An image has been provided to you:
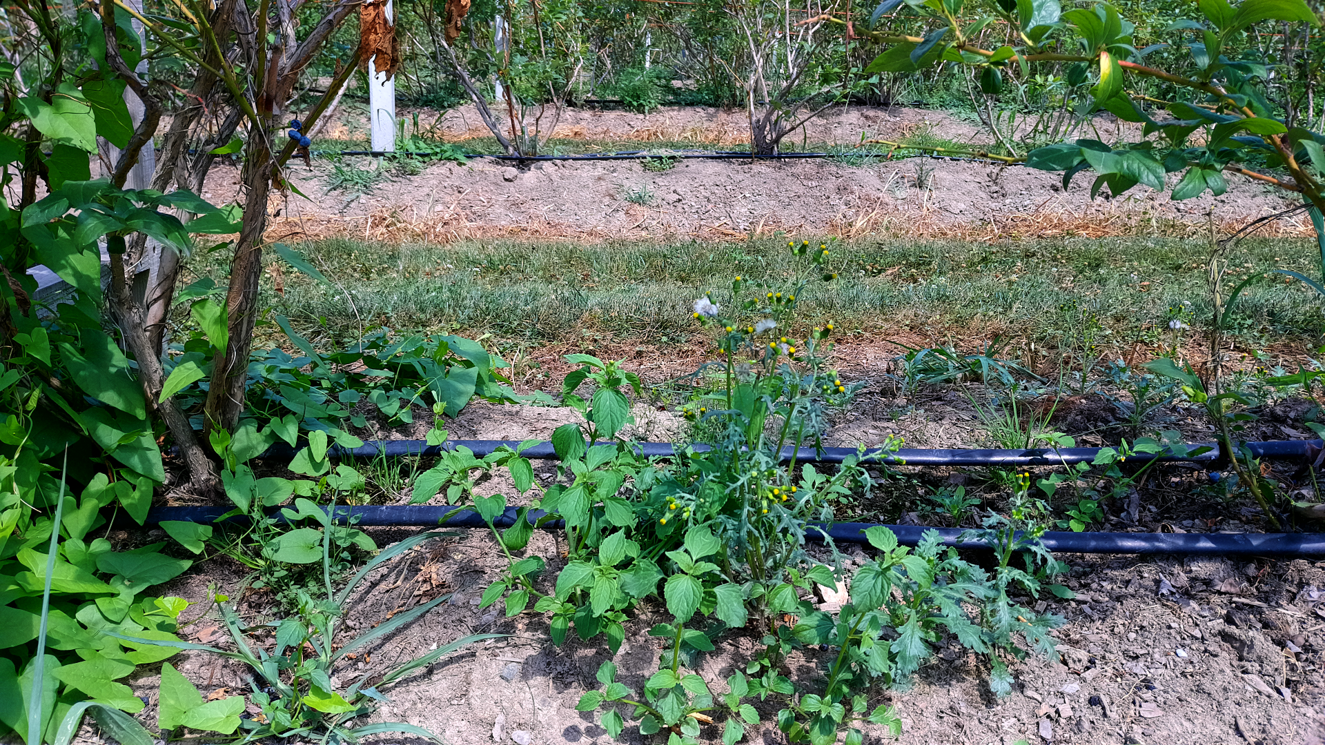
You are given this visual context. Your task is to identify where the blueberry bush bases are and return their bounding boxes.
[2,255,301,580]
[952,102,1066,181]
[721,102,812,172]
[465,106,567,179]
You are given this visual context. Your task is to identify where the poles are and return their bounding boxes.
[363,37,402,171]
[80,0,169,288]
